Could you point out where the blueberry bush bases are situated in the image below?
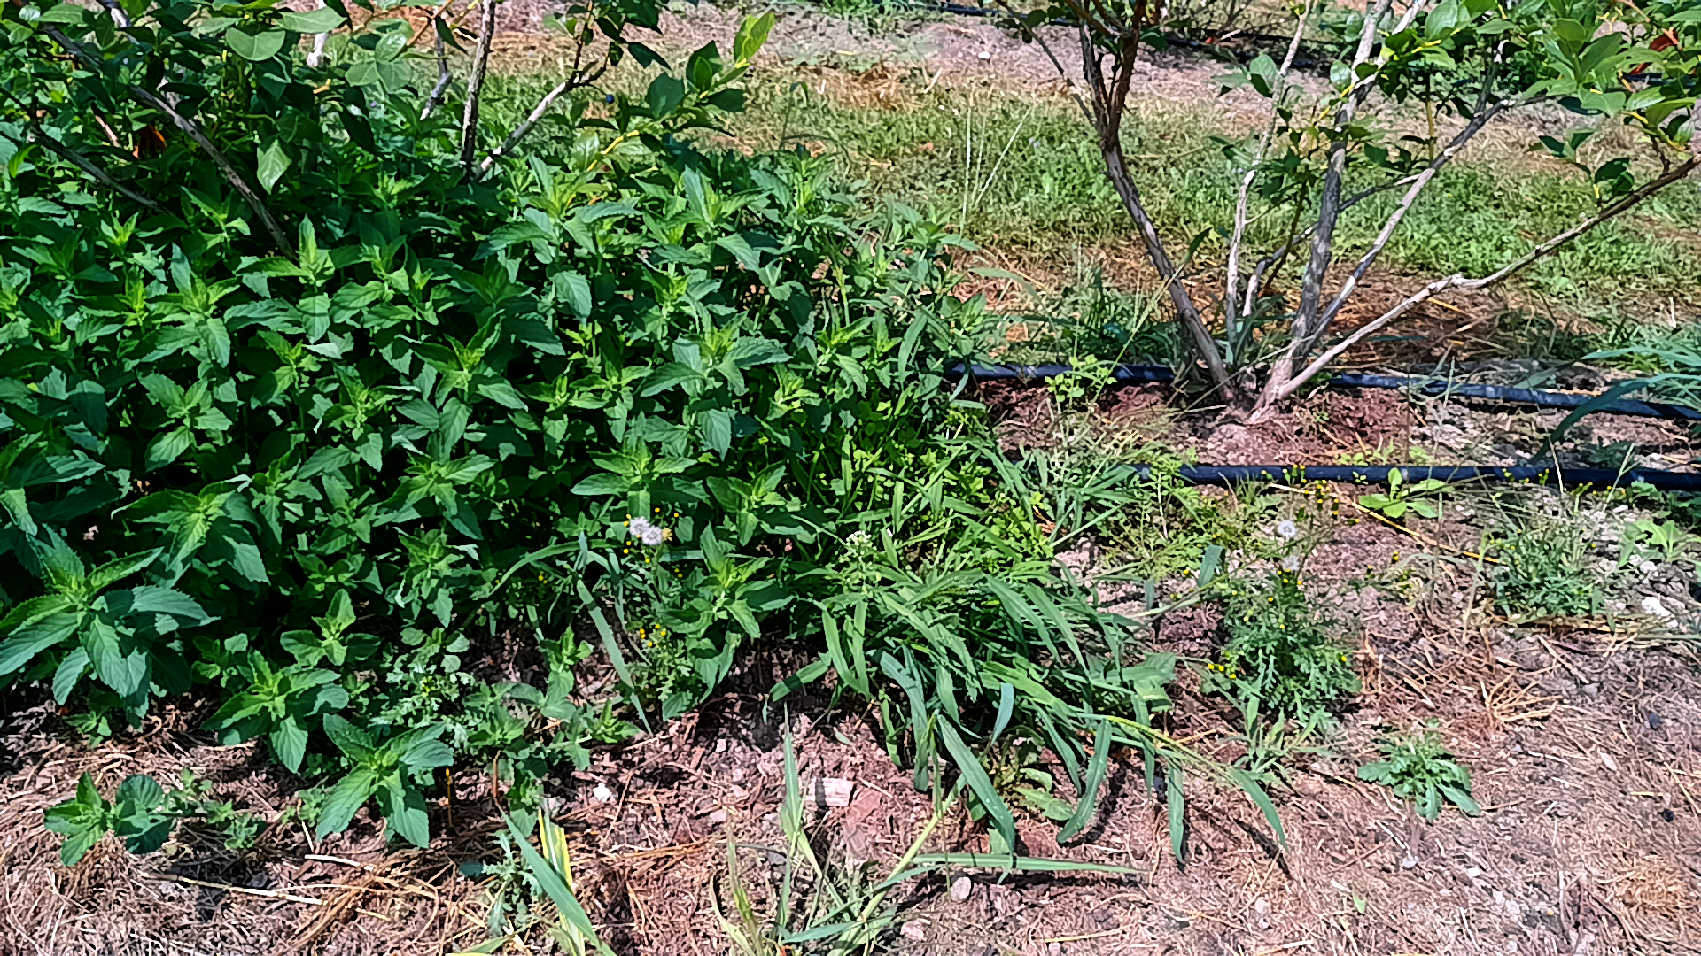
[46,38,584,469]
[1103,221,1464,471]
